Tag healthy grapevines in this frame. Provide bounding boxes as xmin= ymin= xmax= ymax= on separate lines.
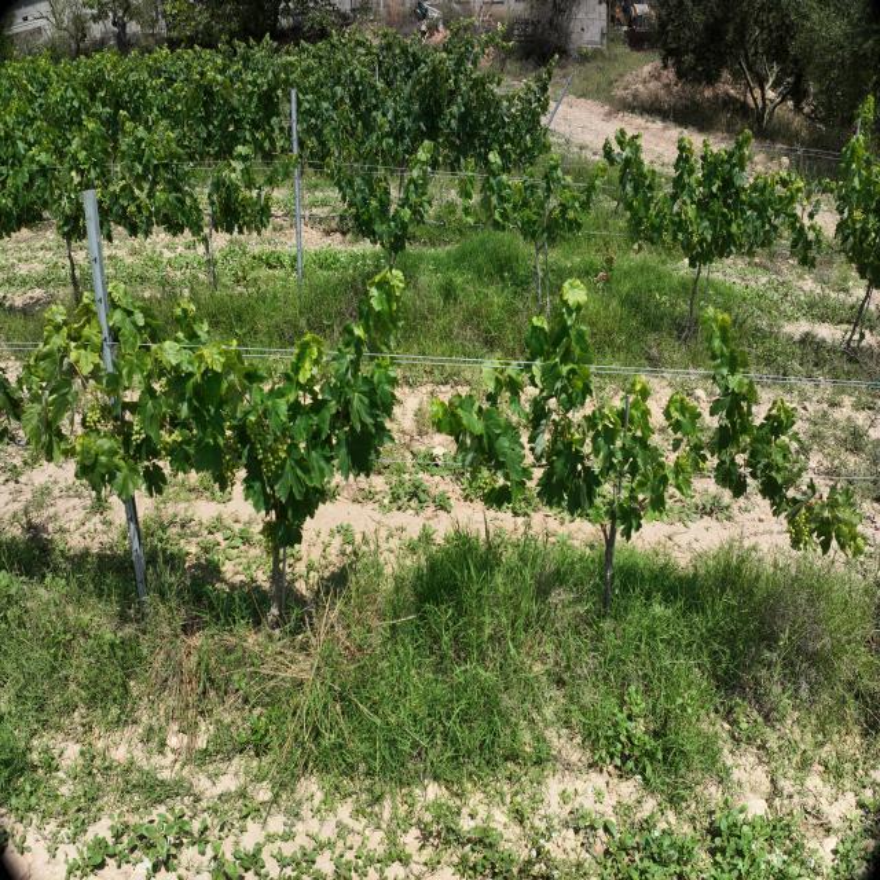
xmin=17 ymin=285 xmax=411 ymax=661
xmin=430 ymin=307 xmax=870 ymax=652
